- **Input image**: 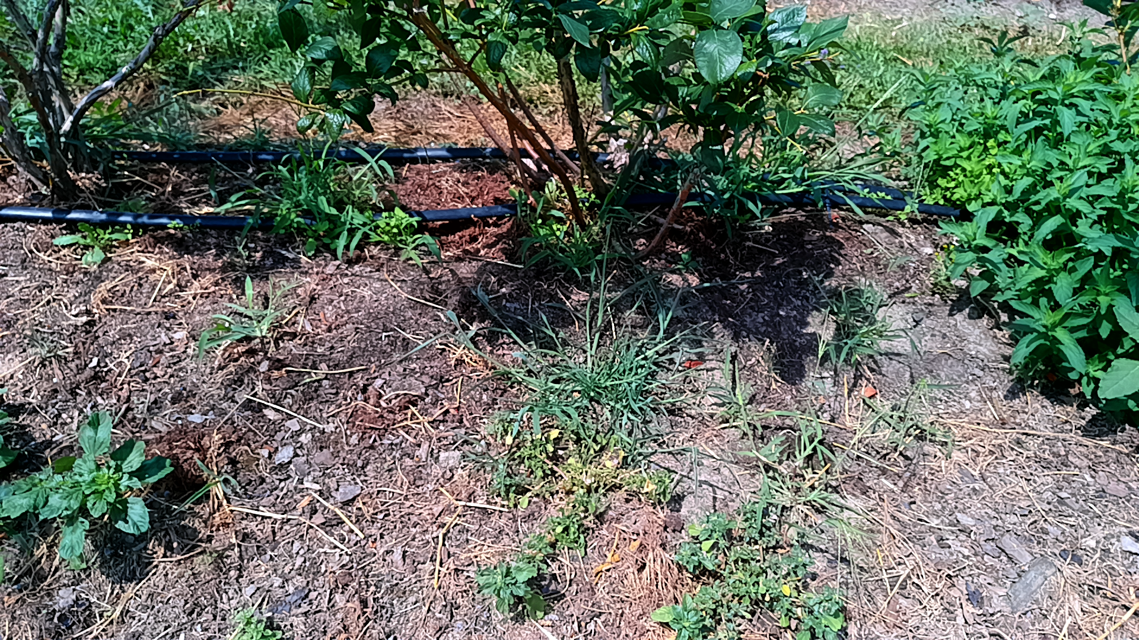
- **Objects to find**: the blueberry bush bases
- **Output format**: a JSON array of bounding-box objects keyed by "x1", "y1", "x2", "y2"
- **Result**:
[
  {"x1": 452, "y1": 61, "x2": 743, "y2": 297},
  {"x1": 0, "y1": 85, "x2": 133, "y2": 232}
]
